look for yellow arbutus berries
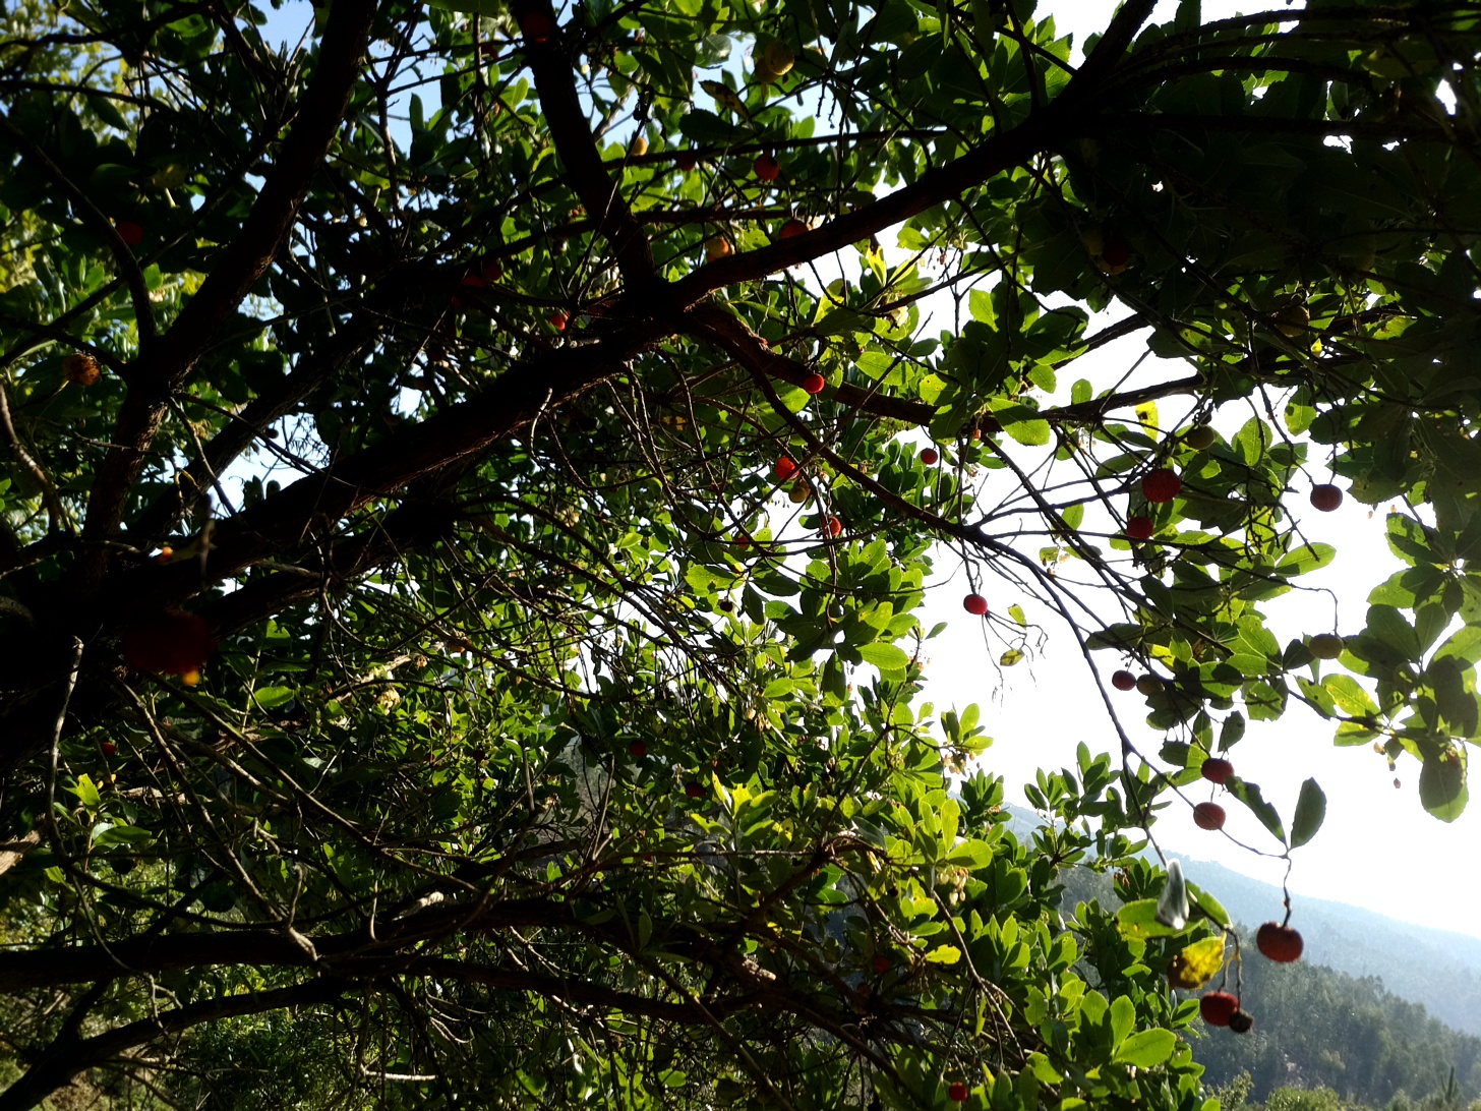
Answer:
[765,42,796,75]
[708,240,731,260]
[59,353,100,385]
[789,487,808,504]
[628,137,648,158]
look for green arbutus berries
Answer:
[757,58,781,81]
[1136,673,1164,694]
[1276,304,1311,336]
[1309,632,1342,661]
[1185,424,1217,451]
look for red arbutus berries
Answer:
[628,737,648,757]
[780,220,807,238]
[1143,467,1182,503]
[753,153,780,181]
[872,955,892,973]
[677,150,696,173]
[1198,756,1236,785]
[1194,800,1226,831]
[964,593,989,617]
[1200,989,1241,1030]
[134,610,220,687]
[1125,513,1153,539]
[551,309,571,330]
[1311,481,1341,512]
[684,781,704,798]
[1112,669,1136,692]
[1257,915,1304,966]
[775,455,800,478]
[94,742,117,760]
[803,375,826,393]
[946,1082,969,1101]
[920,448,938,465]
[819,514,841,536]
